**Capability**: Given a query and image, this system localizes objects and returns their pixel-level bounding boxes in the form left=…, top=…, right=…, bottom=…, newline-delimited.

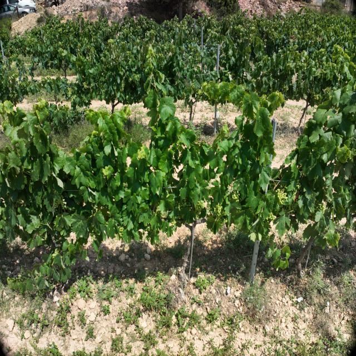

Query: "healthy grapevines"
left=259, top=113, right=356, bottom=290
left=109, top=105, right=259, bottom=299
left=0, top=96, right=105, bottom=306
